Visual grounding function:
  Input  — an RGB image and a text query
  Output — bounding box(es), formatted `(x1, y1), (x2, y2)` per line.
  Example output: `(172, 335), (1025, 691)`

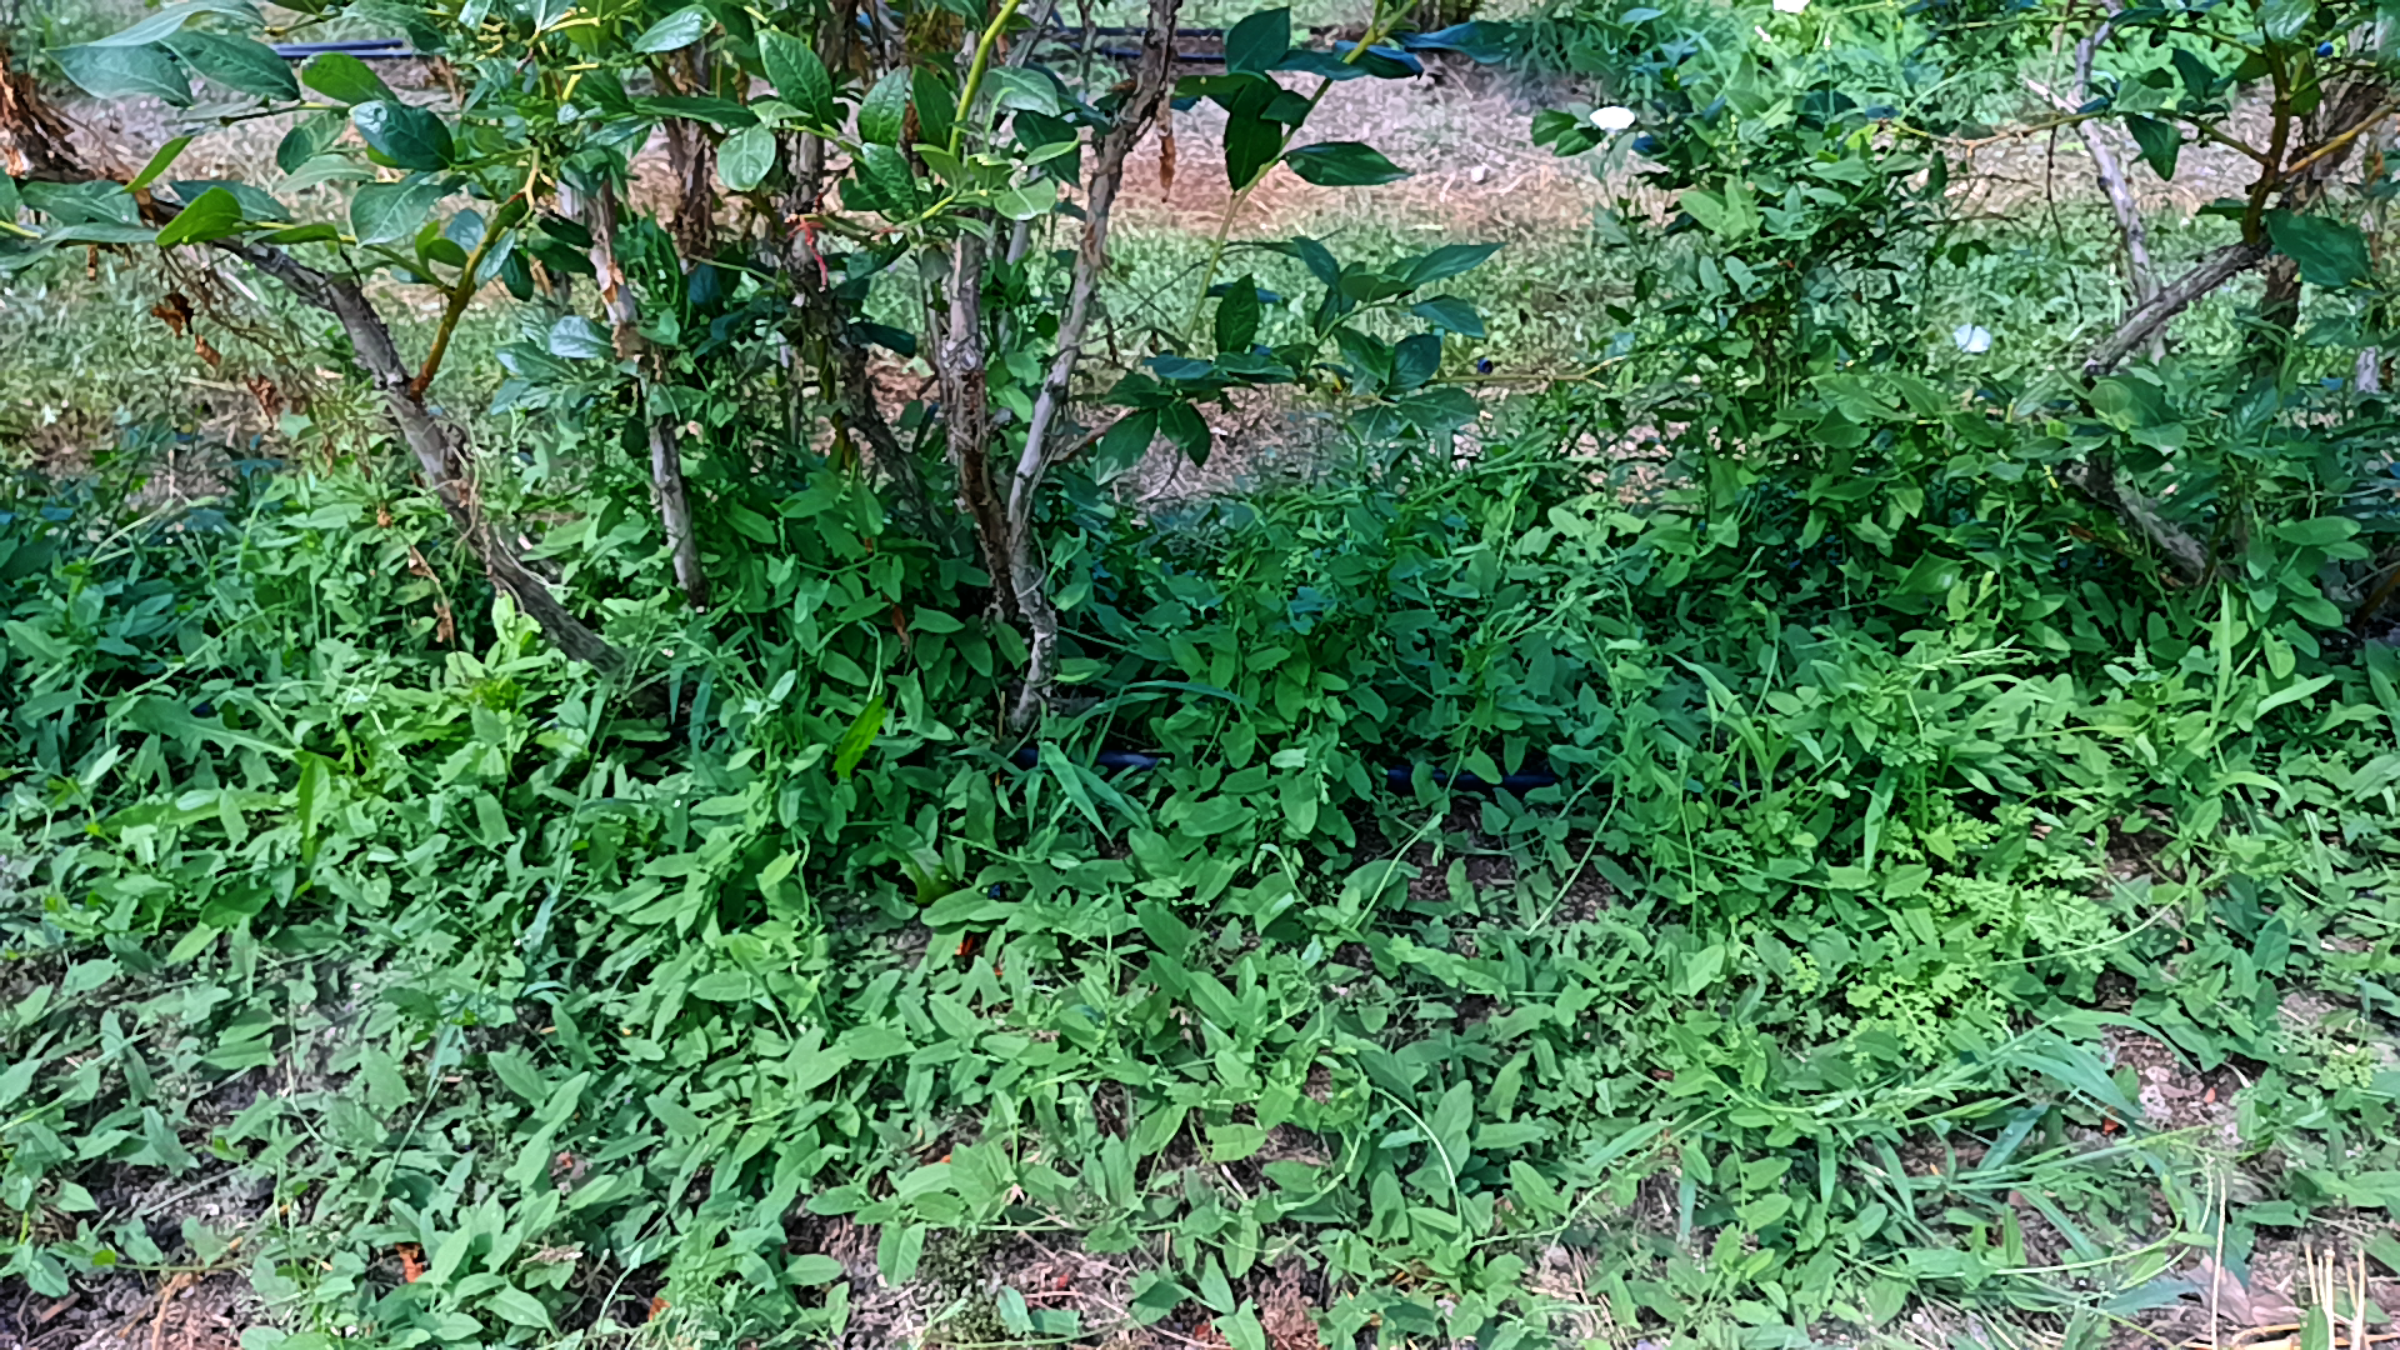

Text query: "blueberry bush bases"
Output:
(2023, 280), (2399, 795)
(370, 310), (1164, 930)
